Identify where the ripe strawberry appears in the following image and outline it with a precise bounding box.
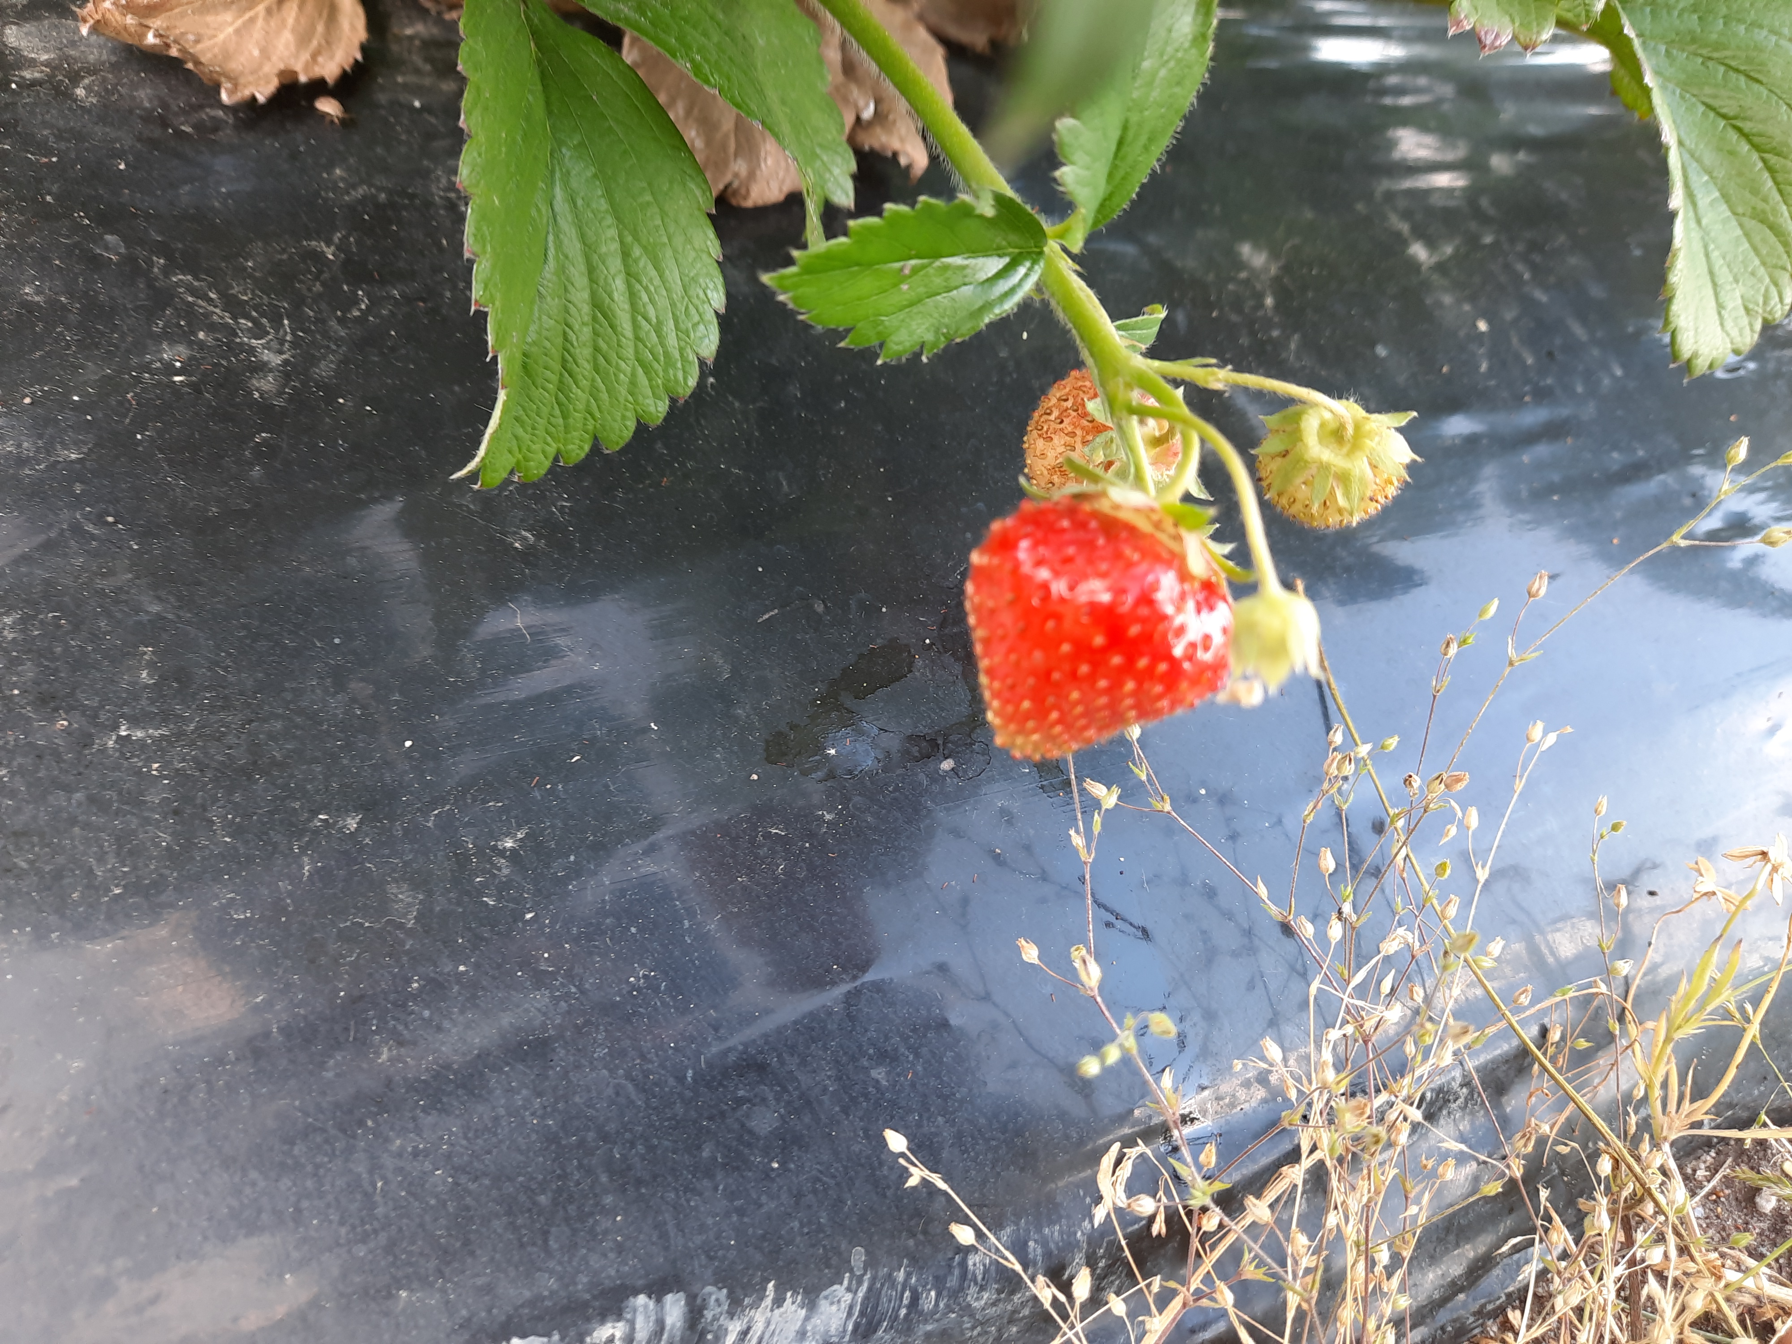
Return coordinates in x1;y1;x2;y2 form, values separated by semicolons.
988;499;1234;738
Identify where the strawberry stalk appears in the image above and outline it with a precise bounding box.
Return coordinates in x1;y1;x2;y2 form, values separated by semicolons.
1063;301;1215;581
